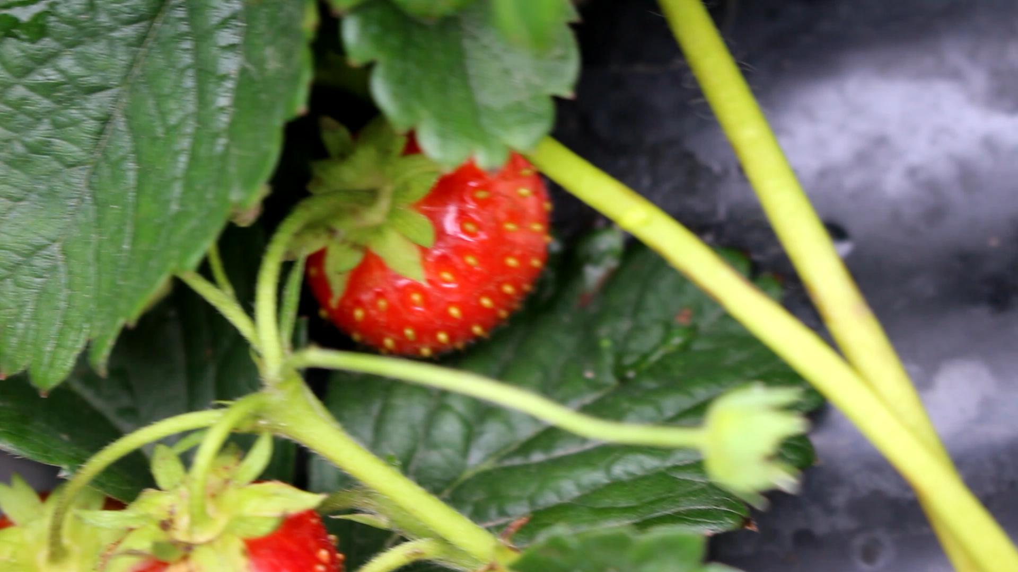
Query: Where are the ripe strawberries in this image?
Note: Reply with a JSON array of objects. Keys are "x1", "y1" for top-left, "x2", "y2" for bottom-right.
[
  {"x1": 100, "y1": 439, "x2": 361, "y2": 572},
  {"x1": 257, "y1": 104, "x2": 598, "y2": 373}
]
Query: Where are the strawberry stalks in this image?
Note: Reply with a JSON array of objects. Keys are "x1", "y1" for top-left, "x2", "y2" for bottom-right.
[
  {"x1": 152, "y1": 405, "x2": 306, "y2": 545},
  {"x1": 257, "y1": 156, "x2": 421, "y2": 392}
]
